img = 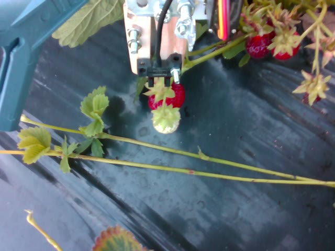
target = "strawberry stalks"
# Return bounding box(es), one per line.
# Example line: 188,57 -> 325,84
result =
277,19 -> 287,47
257,19 -> 263,37
162,74 -> 170,117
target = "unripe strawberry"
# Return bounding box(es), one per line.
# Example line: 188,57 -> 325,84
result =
151,107 -> 182,134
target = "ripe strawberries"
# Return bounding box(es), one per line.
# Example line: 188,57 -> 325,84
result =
150,87 -> 183,108
246,32 -> 269,54
272,31 -> 301,56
